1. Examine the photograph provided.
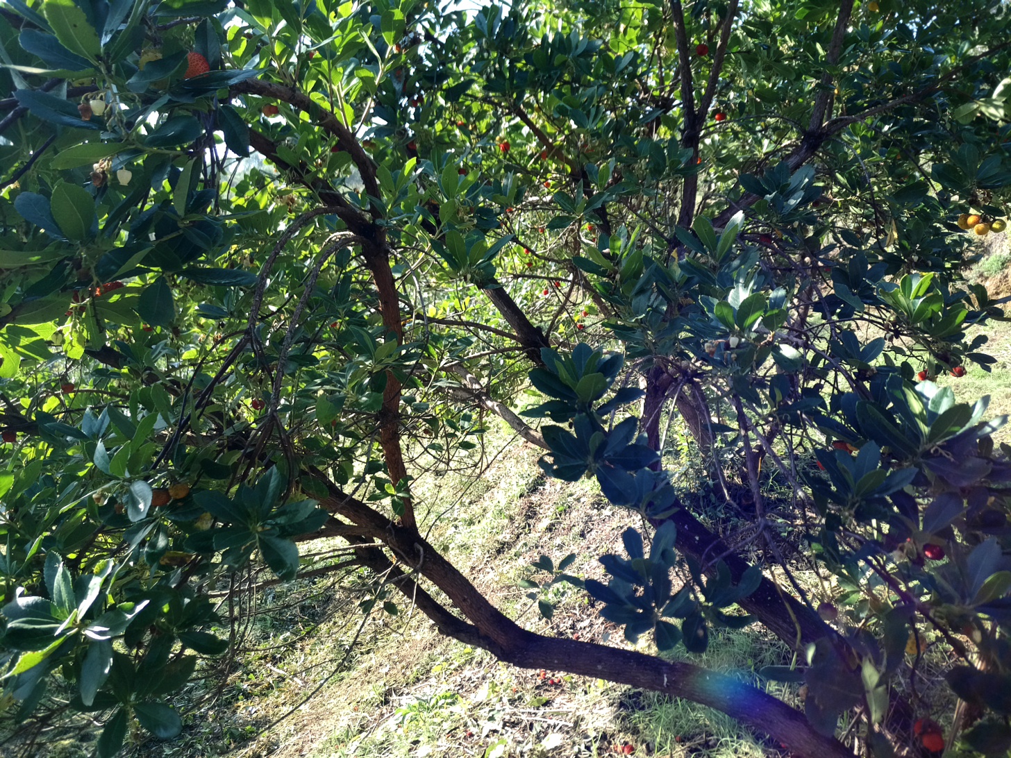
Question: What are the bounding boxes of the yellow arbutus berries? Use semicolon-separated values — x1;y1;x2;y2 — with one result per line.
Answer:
975;221;989;238
957;210;971;230
167;480;190;499
363;140;369;147
967;212;980;228
263;103;272;117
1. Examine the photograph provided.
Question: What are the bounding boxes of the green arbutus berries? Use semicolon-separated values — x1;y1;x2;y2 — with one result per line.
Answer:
370;143;377;151
137;48;163;71
989;217;1006;233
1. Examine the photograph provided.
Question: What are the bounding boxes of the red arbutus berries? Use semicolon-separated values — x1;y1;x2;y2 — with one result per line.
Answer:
61;383;74;393
924;542;944;562
917;368;930;381
407;140;417;151
695;43;710;57
149;486;172;506
714;112;726;120
524;249;530;255
554;281;561;287
499;142;510;151
459;168;468;176
539;227;543;233
458;121;464;126
526;261;533;267
411;99;418;107
587;224;594;231
543;289;549;295
544;181;550;188
582;311;588;317
2;429;16;442
251;400;264;409
950;364;968;379
831;436;851;455
541;150;548;160
181;51;210;78
577;323;583;329
270;104;279;115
